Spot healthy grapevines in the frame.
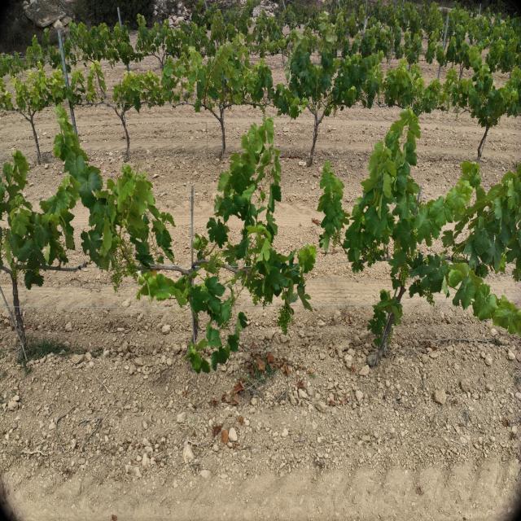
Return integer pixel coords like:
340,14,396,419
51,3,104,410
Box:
78,125,324,362
314,137,521,382
0,146,90,378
